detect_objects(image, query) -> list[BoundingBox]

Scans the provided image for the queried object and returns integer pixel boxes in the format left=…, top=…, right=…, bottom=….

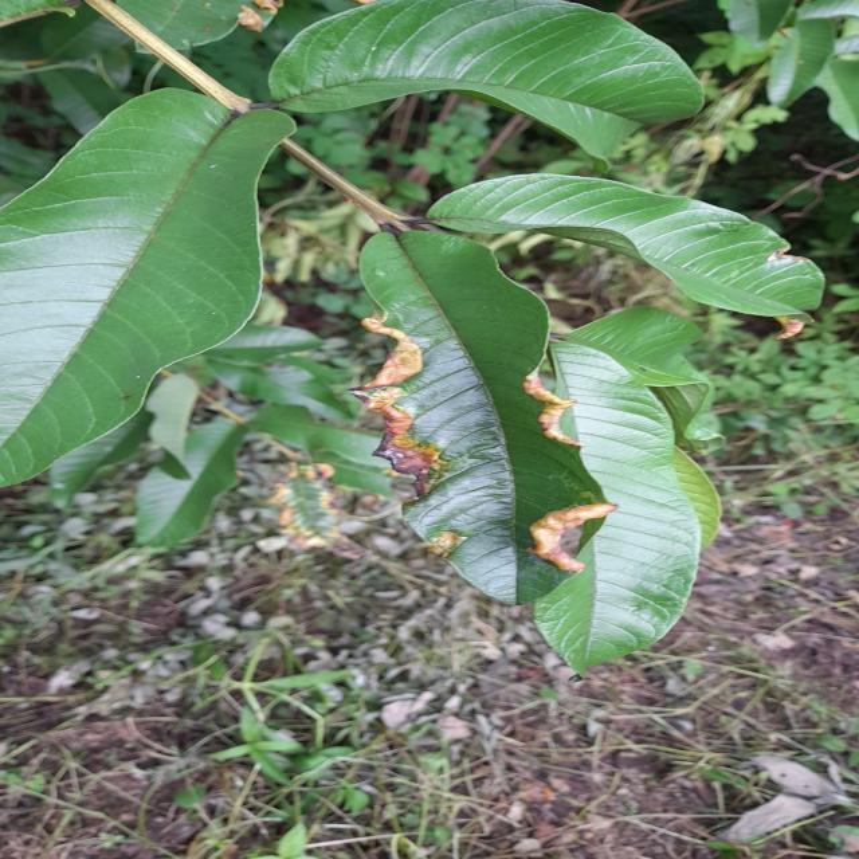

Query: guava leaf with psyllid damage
left=302, top=221, right=631, bottom=626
